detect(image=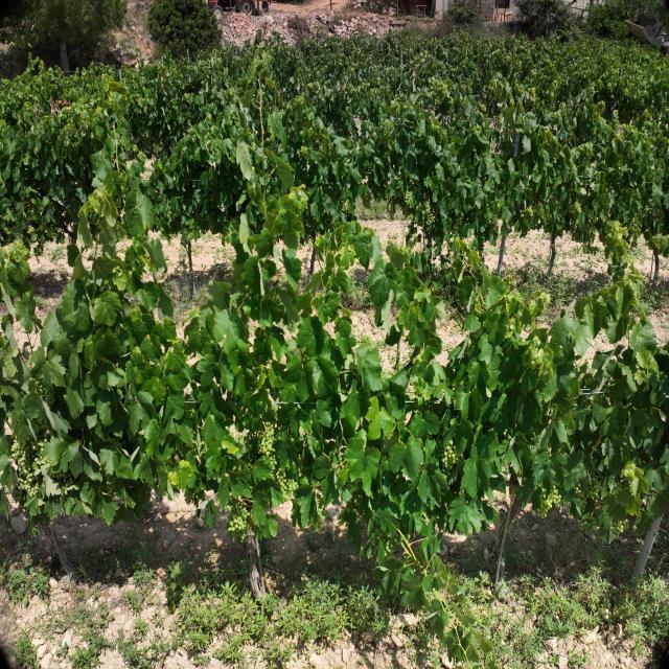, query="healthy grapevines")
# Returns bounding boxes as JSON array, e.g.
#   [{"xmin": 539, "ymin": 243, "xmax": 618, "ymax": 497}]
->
[
  {"xmin": 167, "ymin": 264, "xmax": 410, "ymax": 631},
  {"xmin": 0, "ymin": 201, "xmax": 172, "ymax": 608},
  {"xmin": 411, "ymin": 276, "xmax": 669, "ymax": 619}
]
